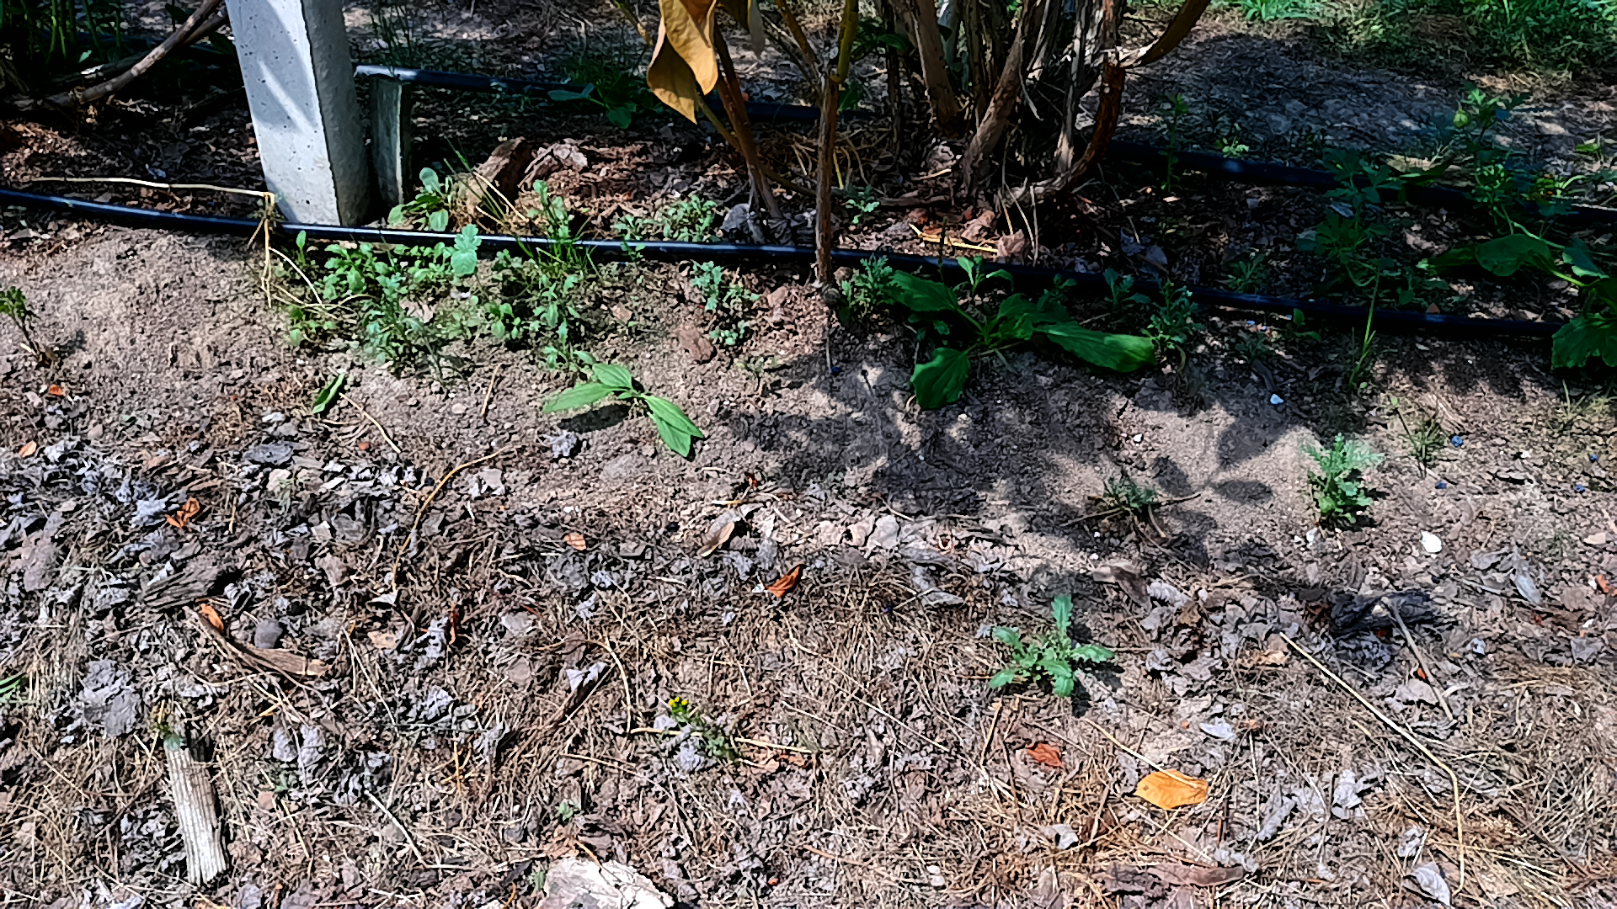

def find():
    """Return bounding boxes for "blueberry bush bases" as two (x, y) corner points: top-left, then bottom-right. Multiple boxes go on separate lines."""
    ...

(658, 0), (1219, 318)
(0, 0), (178, 170)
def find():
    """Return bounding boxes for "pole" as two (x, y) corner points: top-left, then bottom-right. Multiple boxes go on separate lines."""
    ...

(208, 8), (382, 242)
